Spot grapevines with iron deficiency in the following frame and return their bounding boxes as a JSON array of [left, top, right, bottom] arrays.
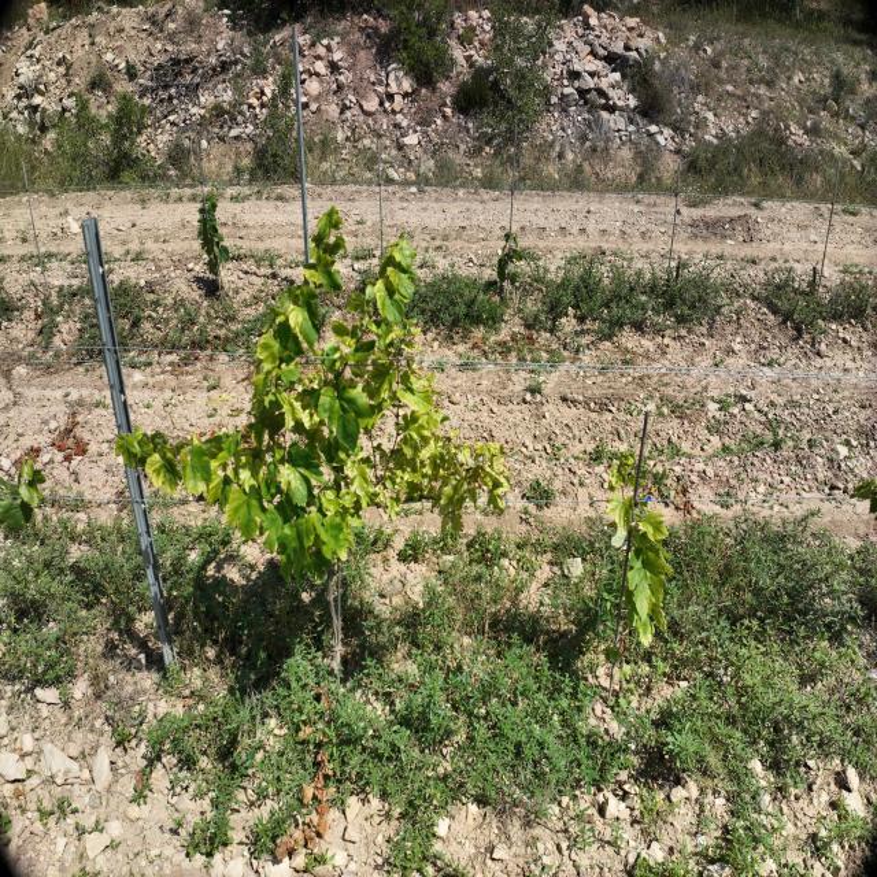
[[593, 447, 684, 671], [112, 211, 516, 706]]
